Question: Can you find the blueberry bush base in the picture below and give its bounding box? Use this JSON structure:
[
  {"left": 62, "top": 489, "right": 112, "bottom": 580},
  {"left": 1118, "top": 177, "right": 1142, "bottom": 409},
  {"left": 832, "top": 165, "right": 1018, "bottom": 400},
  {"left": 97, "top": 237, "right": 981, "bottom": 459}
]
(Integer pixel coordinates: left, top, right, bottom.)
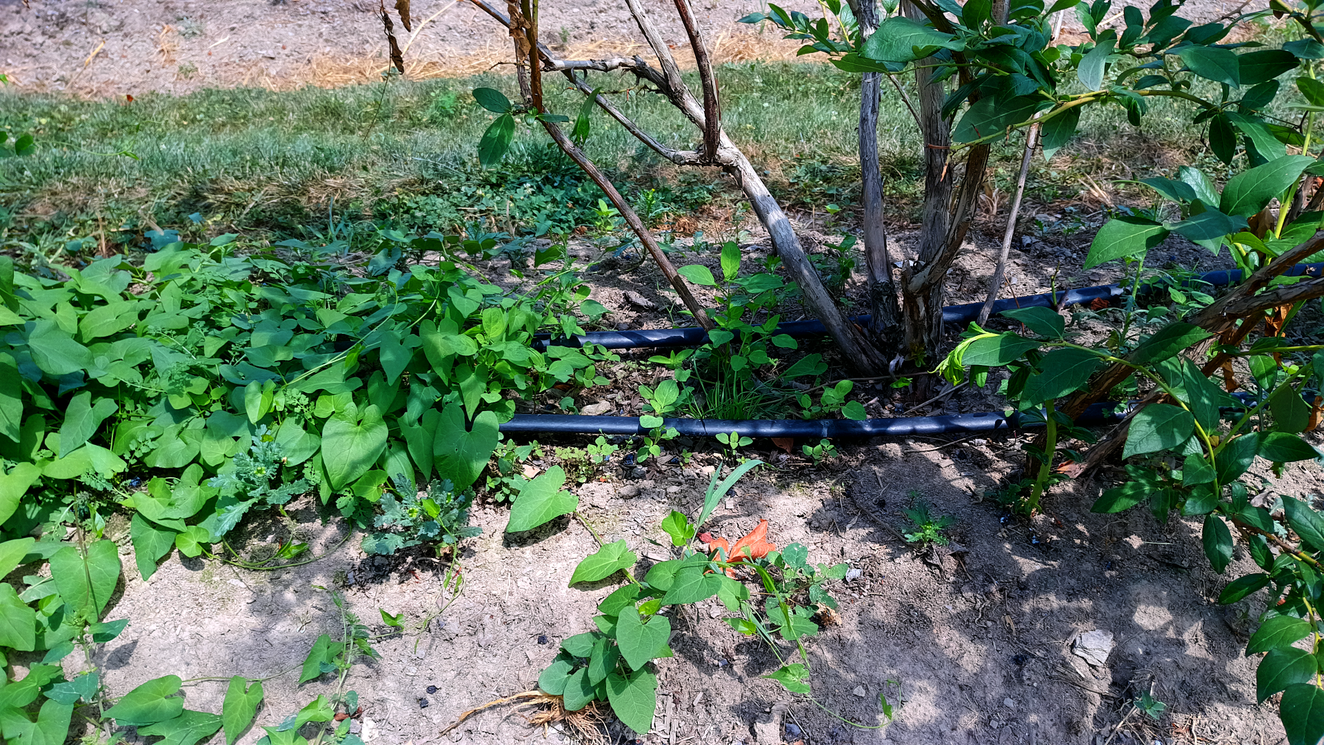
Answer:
[{"left": 659, "top": 115, "right": 1194, "bottom": 502}]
